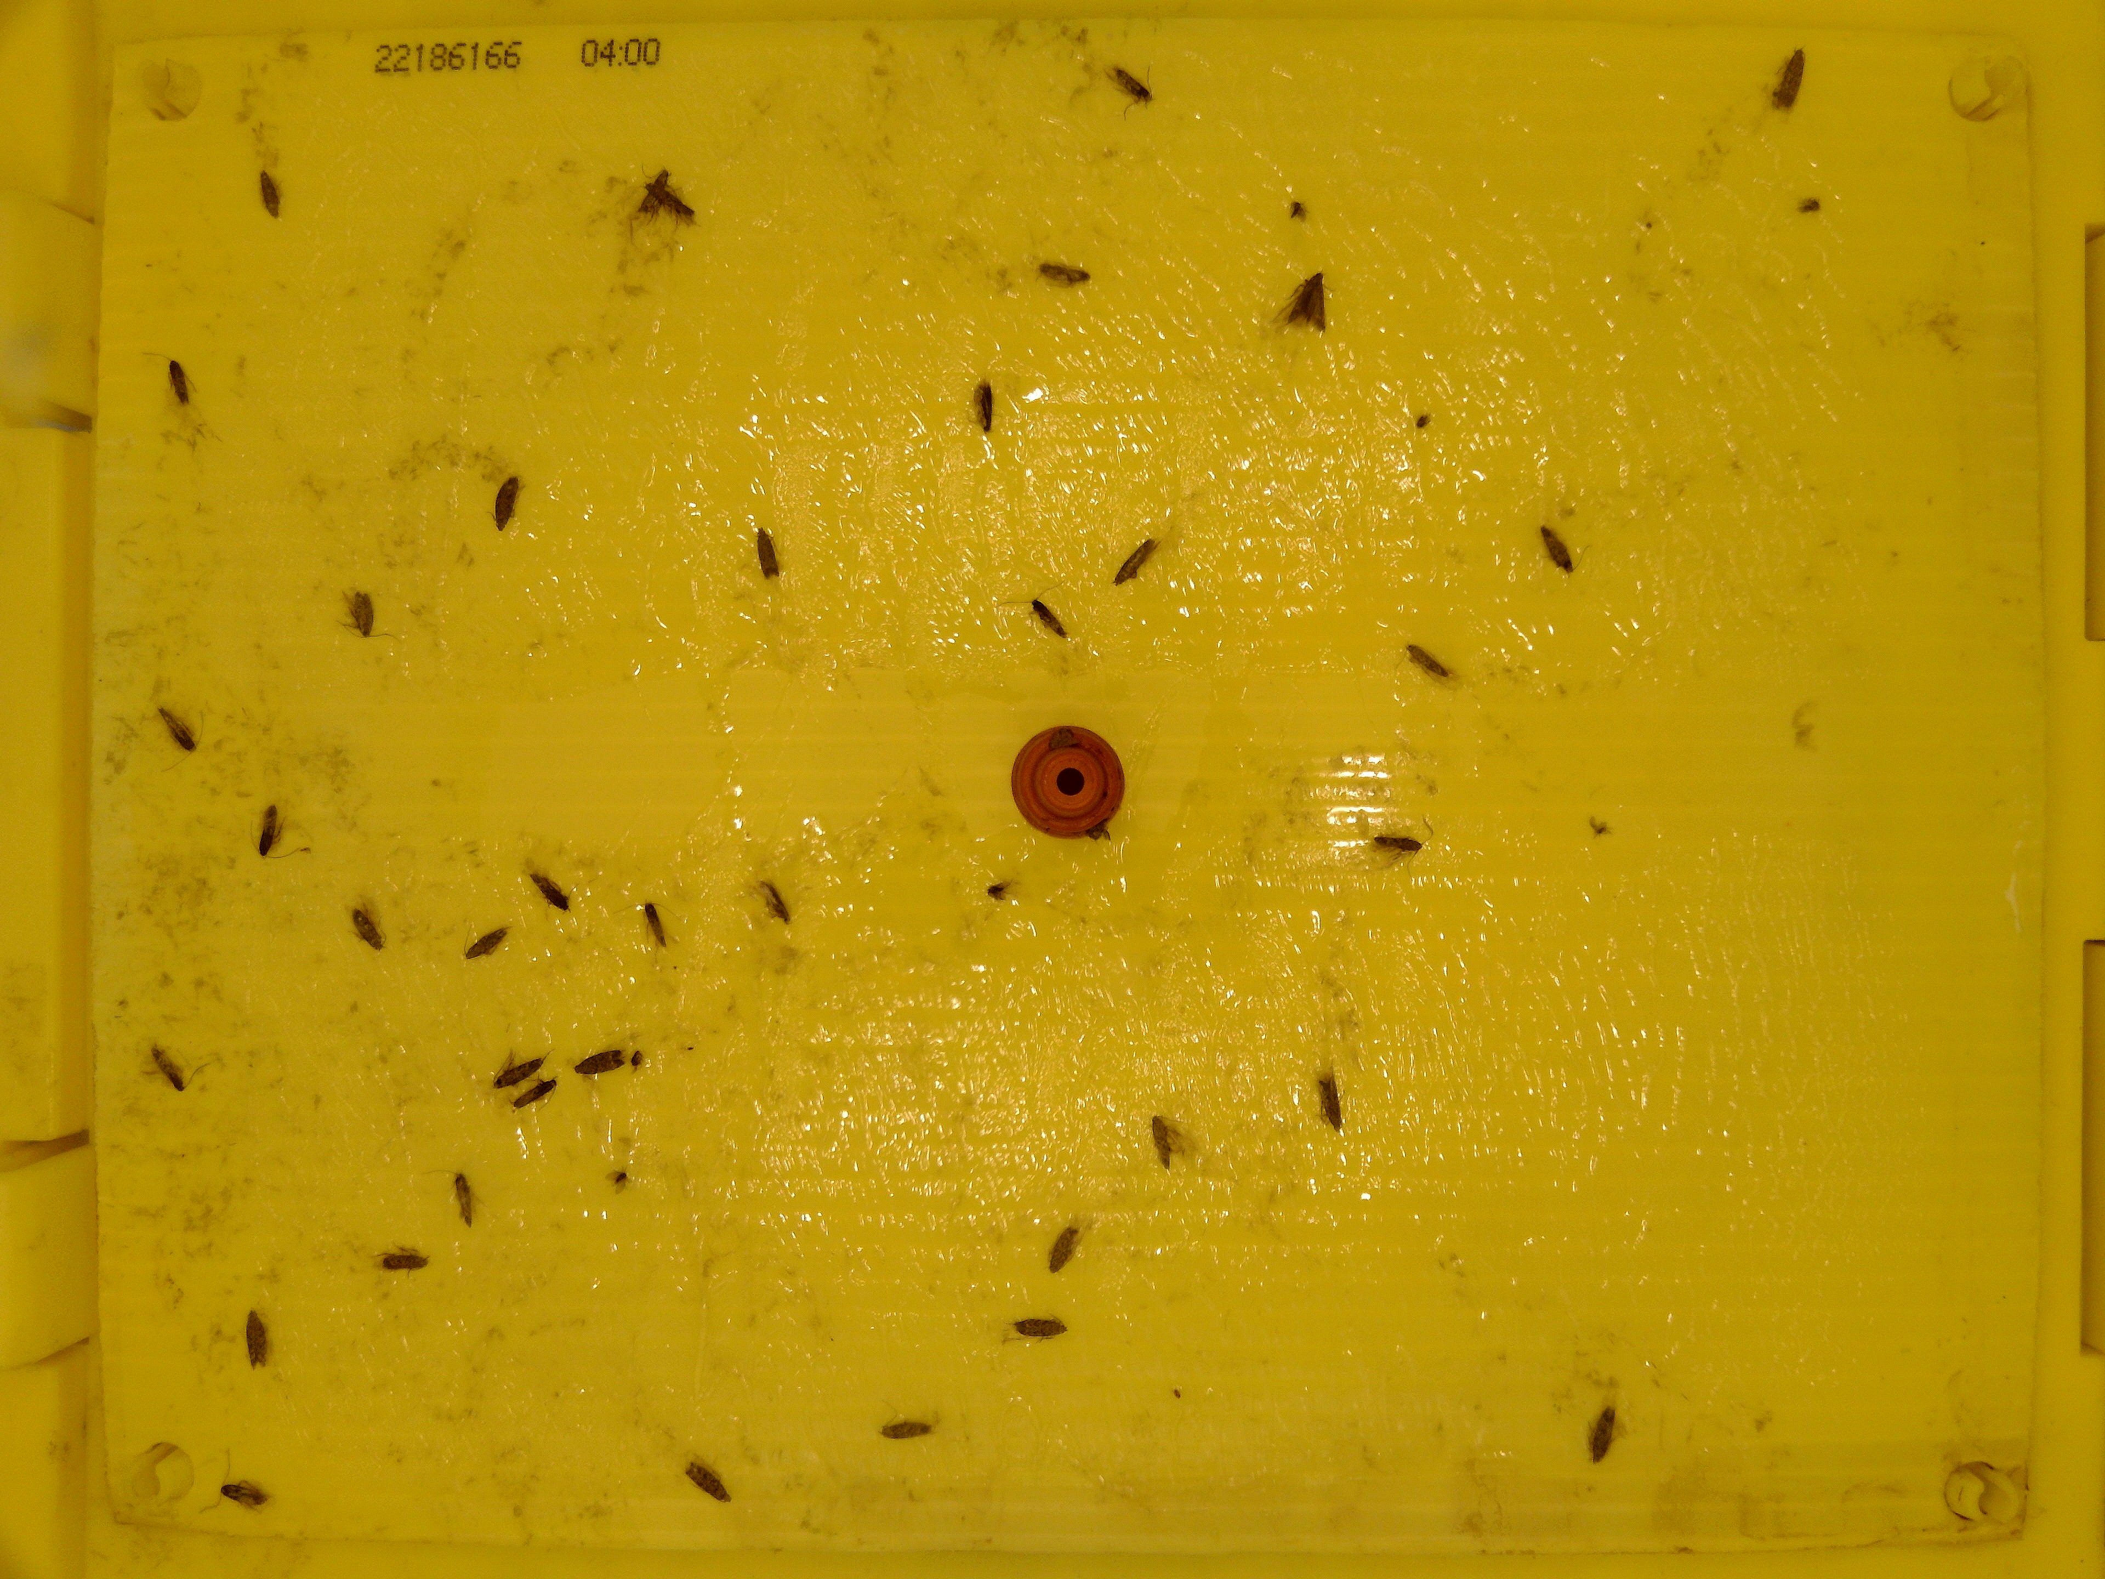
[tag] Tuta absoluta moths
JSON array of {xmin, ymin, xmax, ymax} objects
[
  {"xmin": 573, "ymin": 1045, "xmax": 645, "ymax": 1080},
  {"xmin": 680, "ymin": 1457, "xmax": 734, "ymax": 1504},
  {"xmin": 1050, "ymin": 1221, "xmax": 1084, "ymax": 1277},
  {"xmin": 1037, "ymin": 259, "xmax": 1090, "ymax": 286},
  {"xmin": 880, "ymin": 1416, "xmax": 930, "ymax": 1442},
  {"xmin": 243, "ymin": 1308, "xmax": 267, "ymax": 1369},
  {"xmin": 753, "ymin": 525, "xmax": 780, "ymax": 578},
  {"xmin": 1315, "ymin": 1068, "xmax": 1343, "ymax": 1131},
  {"xmin": 258, "ymin": 168, "xmax": 282, "ymax": 218},
  {"xmin": 1768, "ymin": 46, "xmax": 1804, "ymax": 109},
  {"xmin": 157, "ymin": 705, "xmax": 196, "ymax": 752},
  {"xmin": 256, "ymin": 803, "xmax": 282, "ymax": 856},
  {"xmin": 510, "ymin": 1080, "xmax": 556, "ymax": 1110},
  {"xmin": 1107, "ymin": 63, "xmax": 1152, "ymax": 116},
  {"xmin": 1280, "ymin": 270, "xmax": 1328, "ymax": 332},
  {"xmin": 224, "ymin": 1477, "xmax": 267, "ymax": 1509},
  {"xmin": 167, "ymin": 359, "xmax": 192, "ymax": 404},
  {"xmin": 1373, "ymin": 830, "xmax": 1431, "ymax": 855},
  {"xmin": 1148, "ymin": 1113, "xmax": 1180, "ymax": 1170},
  {"xmin": 1538, "ymin": 524, "xmax": 1573, "ymax": 572},
  {"xmin": 464, "ymin": 924, "xmax": 509, "ymax": 959},
  {"xmin": 493, "ymin": 474, "xmax": 521, "ymax": 530},
  {"xmin": 344, "ymin": 588, "xmax": 374, "ymax": 637},
  {"xmin": 634, "ymin": 166, "xmax": 695, "ymax": 228},
  {"xmin": 152, "ymin": 1040, "xmax": 188, "ymax": 1094},
  {"xmin": 1010, "ymin": 1317, "xmax": 1073, "ymax": 1339},
  {"xmin": 1113, "ymin": 536, "xmax": 1157, "ymax": 584},
  {"xmin": 638, "ymin": 900, "xmax": 669, "ymax": 948},
  {"xmin": 528, "ymin": 868, "xmax": 571, "ymax": 913},
  {"xmin": 971, "ymin": 378, "xmax": 993, "ymax": 434},
  {"xmin": 1585, "ymin": 1408, "xmax": 1617, "ymax": 1469},
  {"xmin": 452, "ymin": 1171, "xmax": 476, "ymax": 1225},
  {"xmin": 1404, "ymin": 641, "xmax": 1452, "ymax": 680},
  {"xmin": 1028, "ymin": 597, "xmax": 1067, "ymax": 639},
  {"xmin": 350, "ymin": 901, "xmax": 384, "ymax": 950},
  {"xmin": 756, "ymin": 878, "xmax": 791, "ymax": 924},
  {"xmin": 492, "ymin": 1048, "xmax": 547, "ymax": 1089}
]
